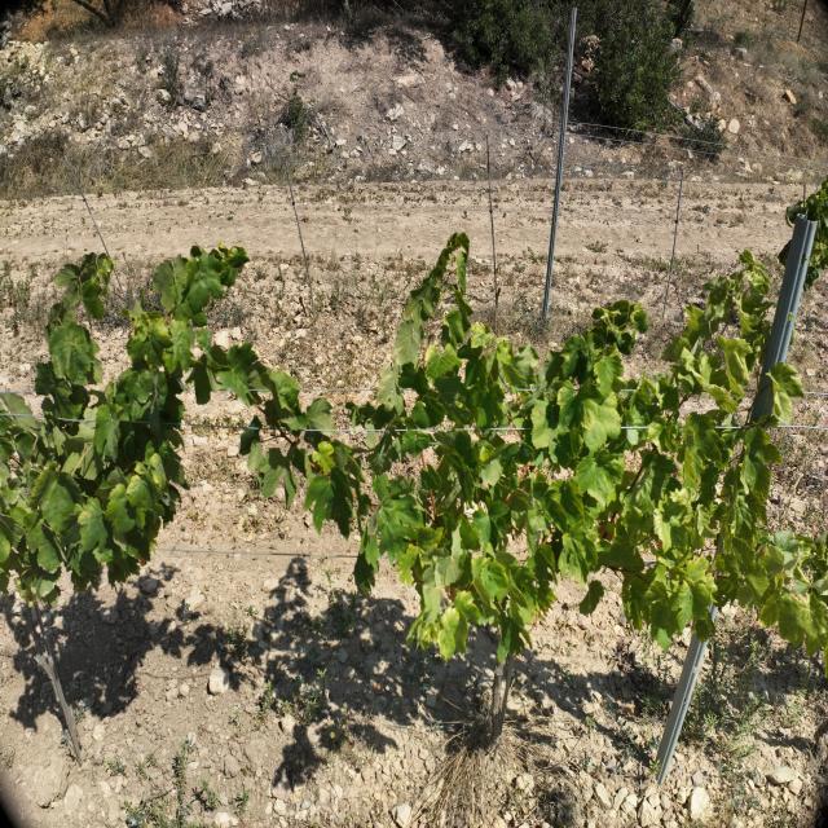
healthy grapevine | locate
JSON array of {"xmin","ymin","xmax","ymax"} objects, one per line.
[{"xmin": 0, "ymin": 226, "xmax": 250, "ymax": 768}]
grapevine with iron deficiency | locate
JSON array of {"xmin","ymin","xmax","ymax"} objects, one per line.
[{"xmin": 257, "ymin": 256, "xmax": 823, "ymax": 779}]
